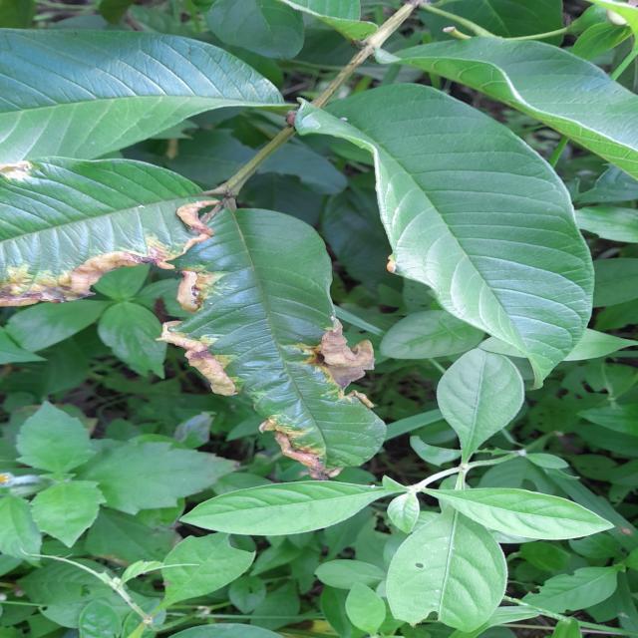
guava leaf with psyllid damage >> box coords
[151,195,405,518]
